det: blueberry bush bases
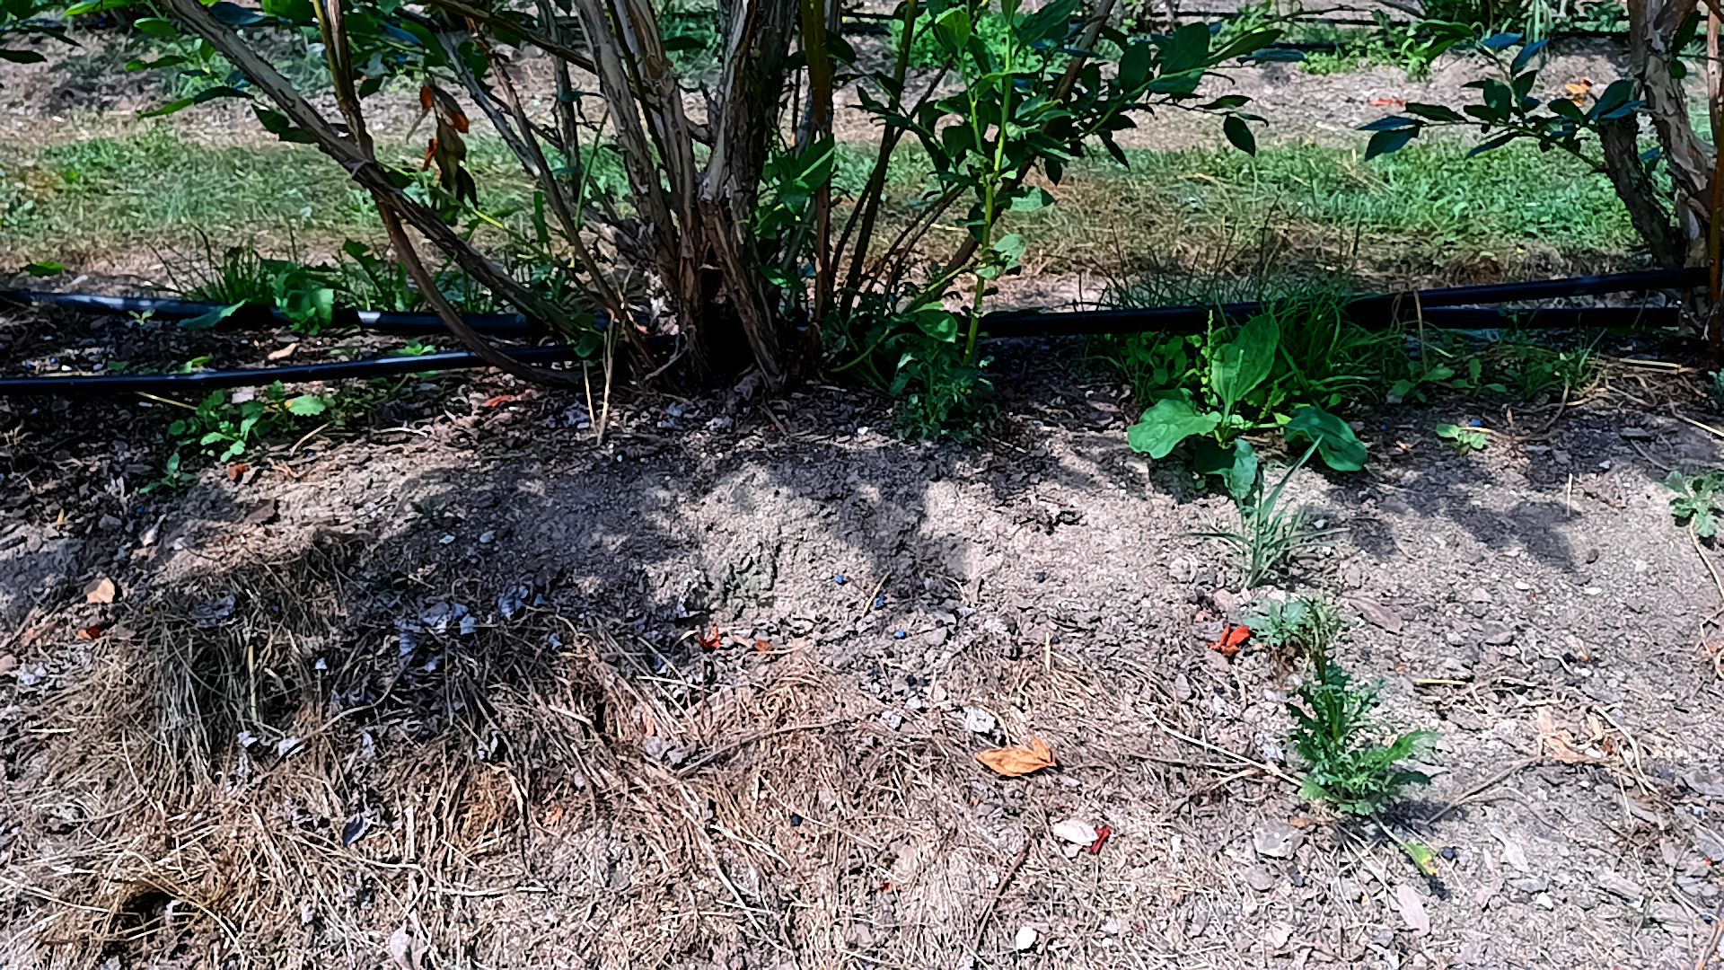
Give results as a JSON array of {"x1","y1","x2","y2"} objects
[
  {"x1": 416, "y1": 110, "x2": 1012, "y2": 473},
  {"x1": 1600, "y1": 108, "x2": 1724, "y2": 407}
]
